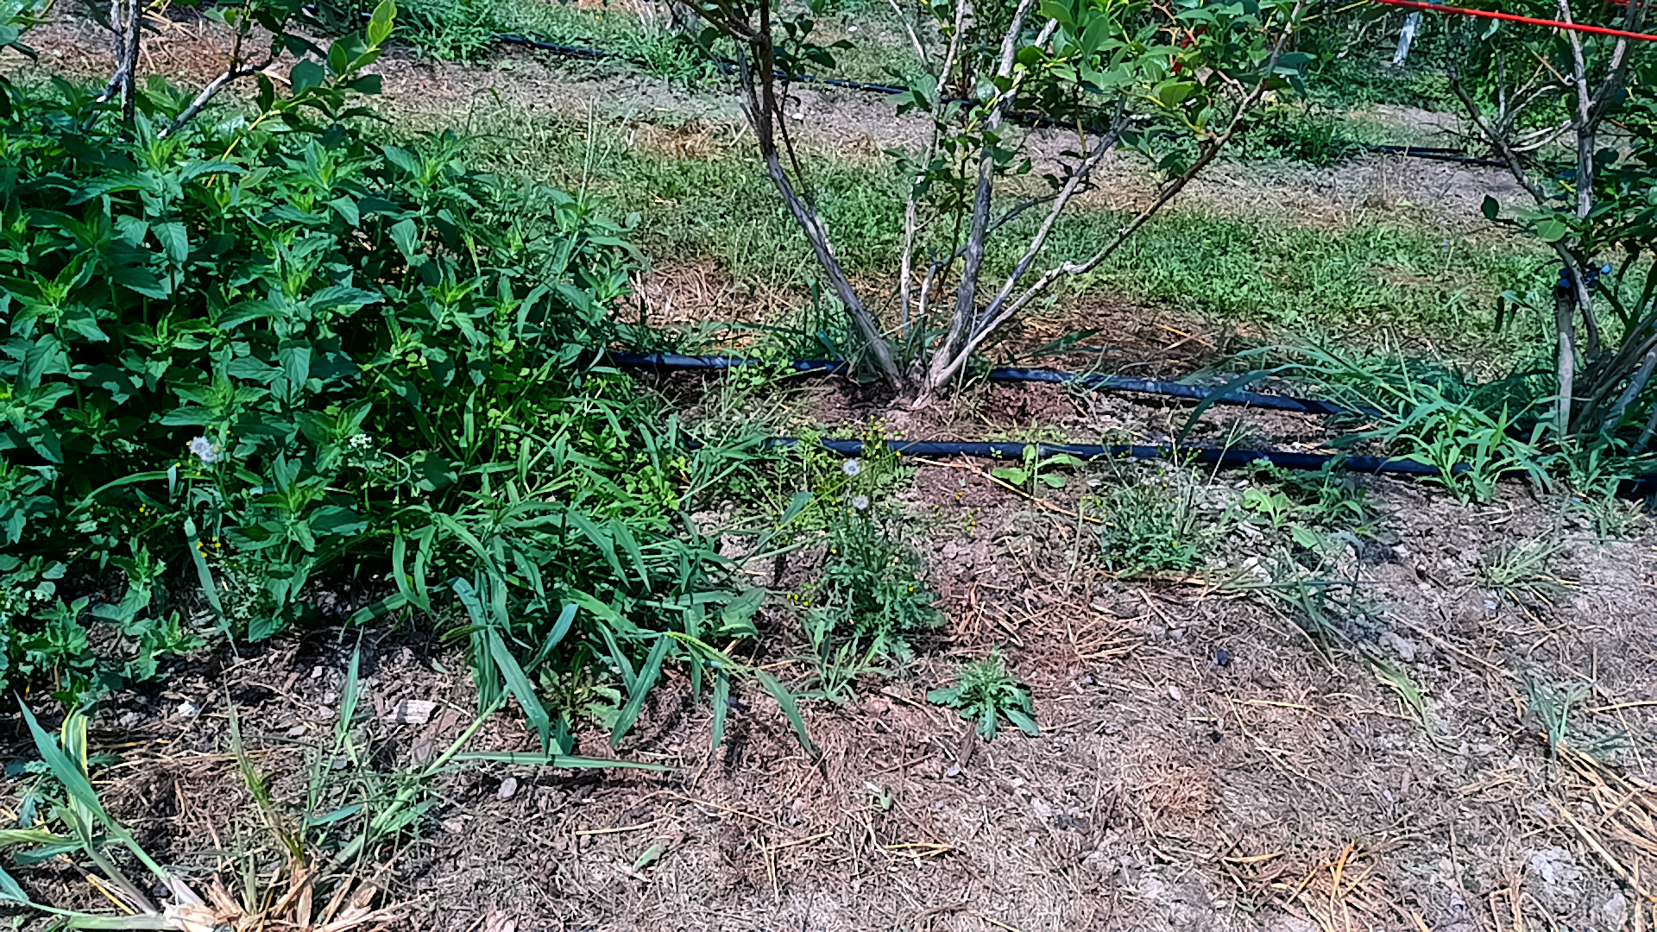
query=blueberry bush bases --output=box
[0,21,237,272]
[1508,269,1657,512]
[756,208,1099,466]
[1446,91,1570,181]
